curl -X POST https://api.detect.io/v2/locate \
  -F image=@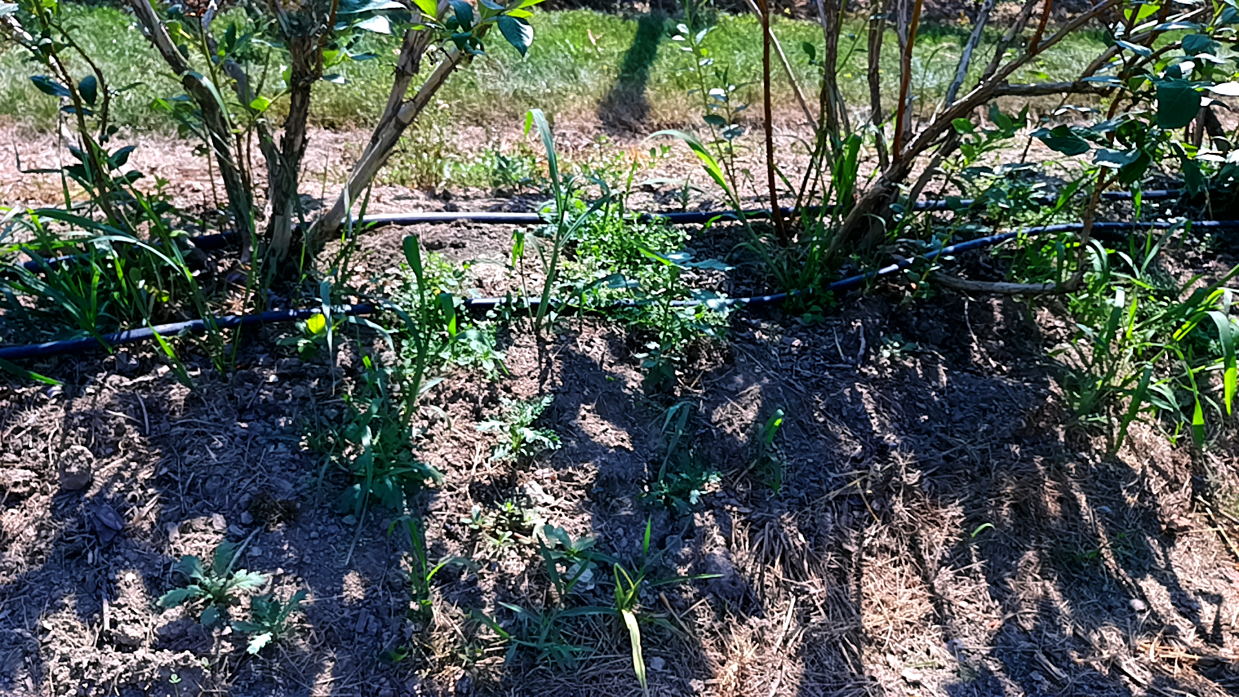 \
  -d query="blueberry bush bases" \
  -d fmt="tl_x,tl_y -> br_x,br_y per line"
95,142 -> 453,405
726,75 -> 1028,372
